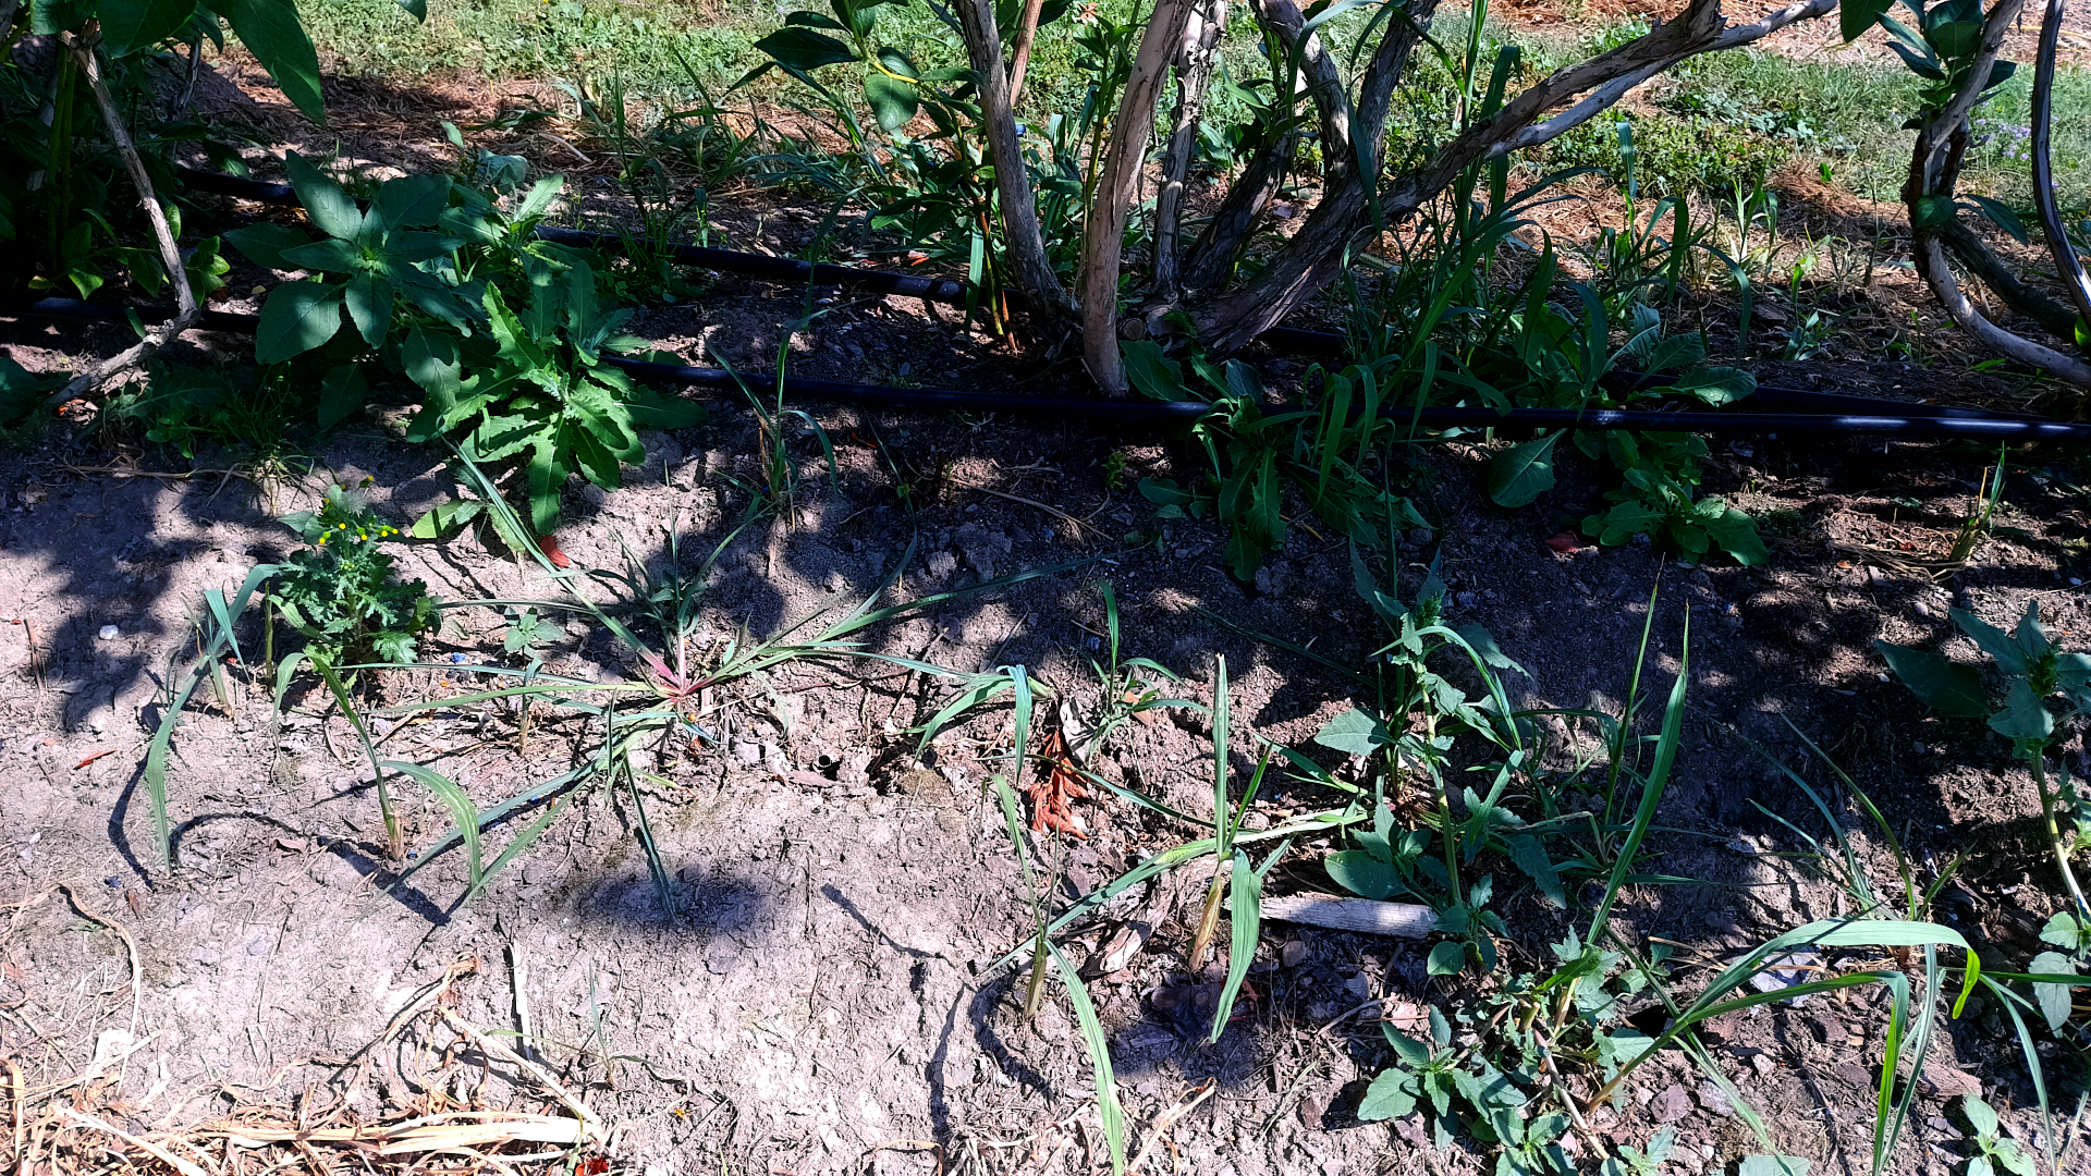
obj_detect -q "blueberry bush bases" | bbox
[2,70,190,483]
[911,75,1398,540]
[1939,139,2090,465]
